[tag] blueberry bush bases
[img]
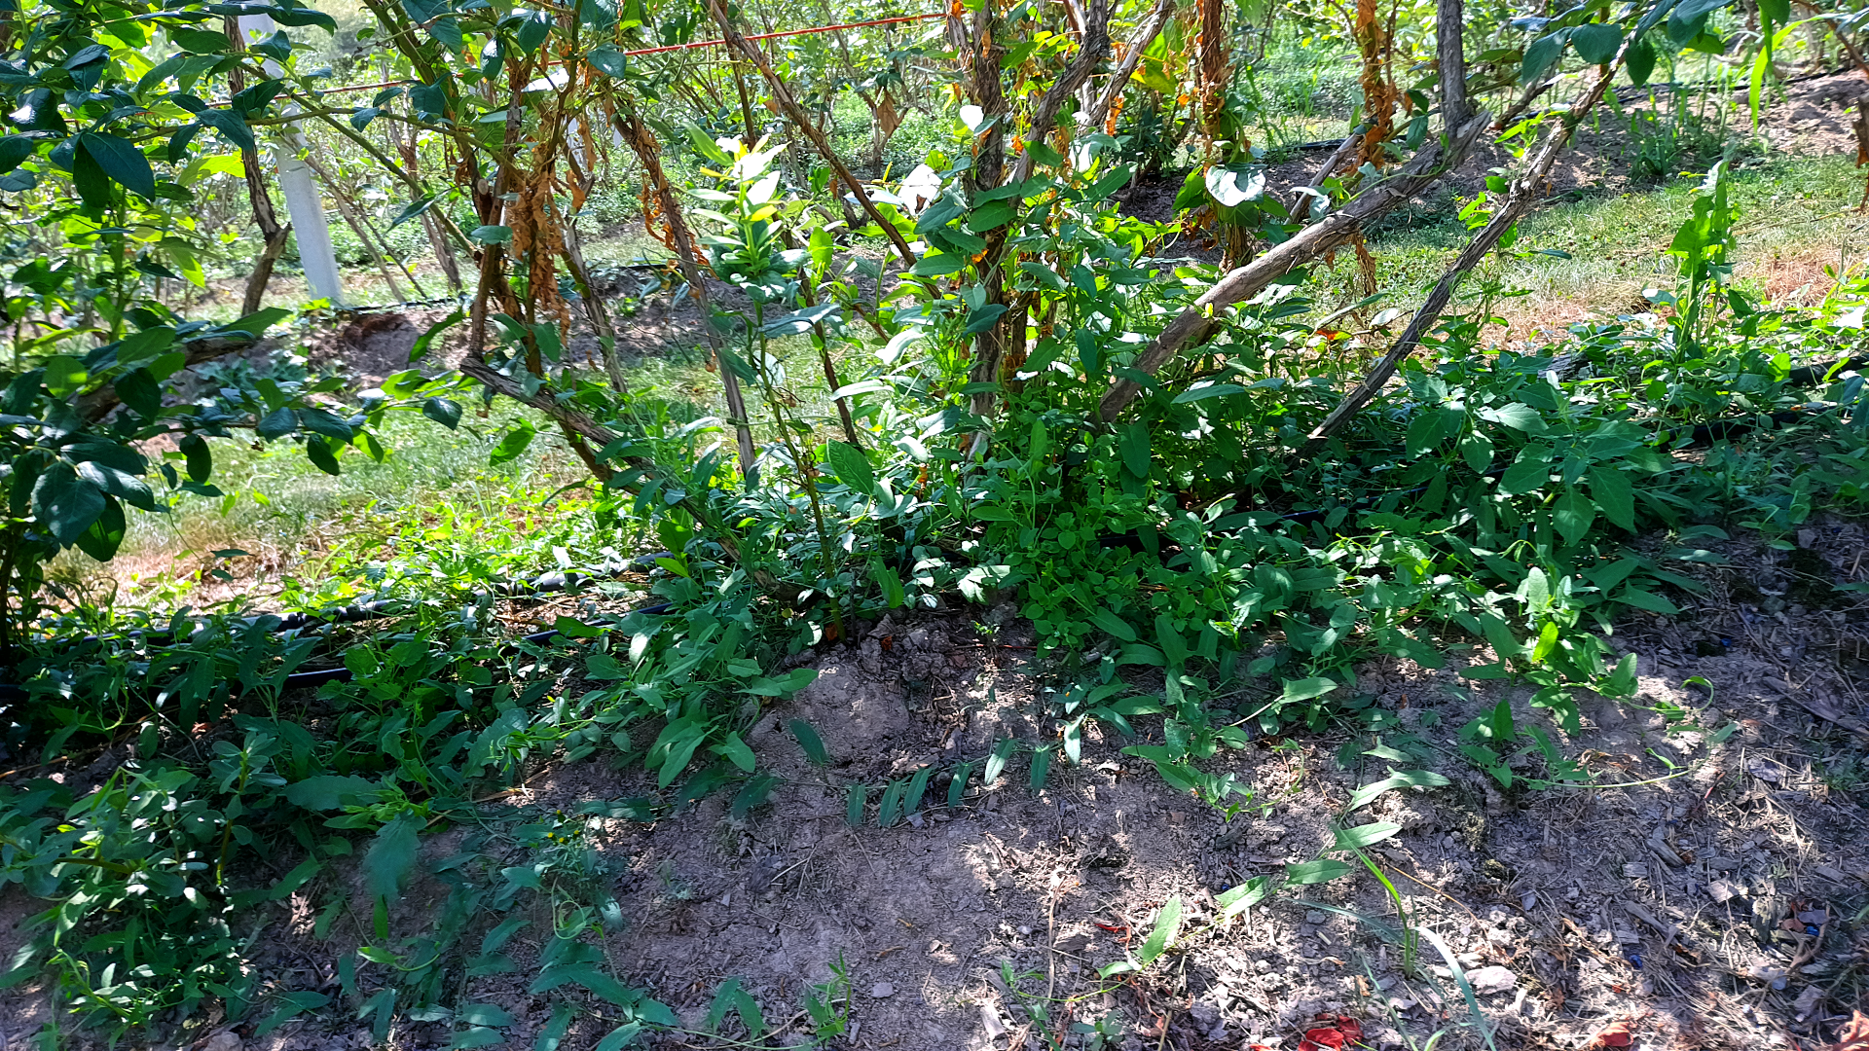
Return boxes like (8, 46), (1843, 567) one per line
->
(4, 455), (150, 848)
(522, 323), (1265, 697)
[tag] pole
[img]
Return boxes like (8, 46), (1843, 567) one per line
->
(249, 0), (357, 361)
